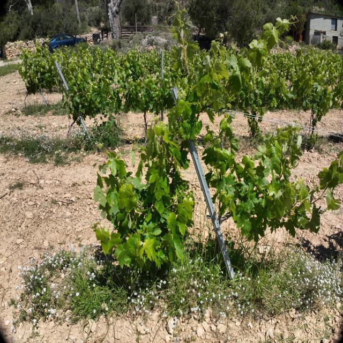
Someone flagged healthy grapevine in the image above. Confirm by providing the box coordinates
[91,65,343,293]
